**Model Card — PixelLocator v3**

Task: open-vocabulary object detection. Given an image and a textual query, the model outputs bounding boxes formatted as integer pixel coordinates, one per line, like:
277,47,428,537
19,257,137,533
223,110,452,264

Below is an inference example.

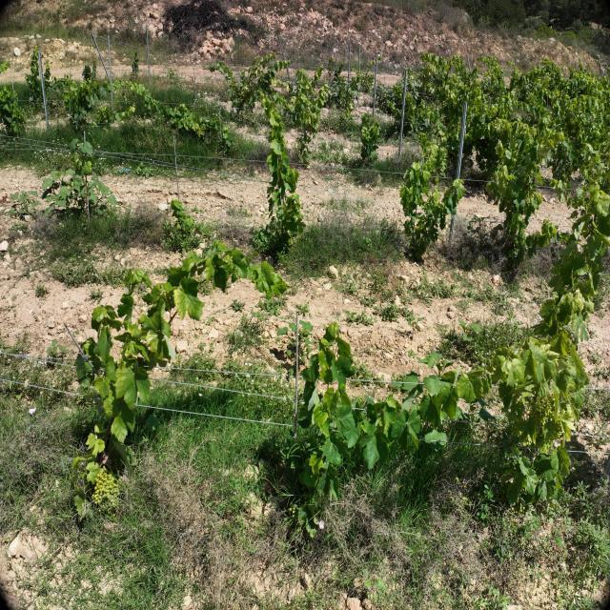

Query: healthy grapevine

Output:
293,315,485,515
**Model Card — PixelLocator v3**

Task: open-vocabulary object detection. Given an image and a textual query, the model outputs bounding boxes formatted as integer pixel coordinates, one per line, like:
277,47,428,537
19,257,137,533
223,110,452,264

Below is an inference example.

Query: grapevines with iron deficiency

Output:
490,223,610,524
63,235,292,497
